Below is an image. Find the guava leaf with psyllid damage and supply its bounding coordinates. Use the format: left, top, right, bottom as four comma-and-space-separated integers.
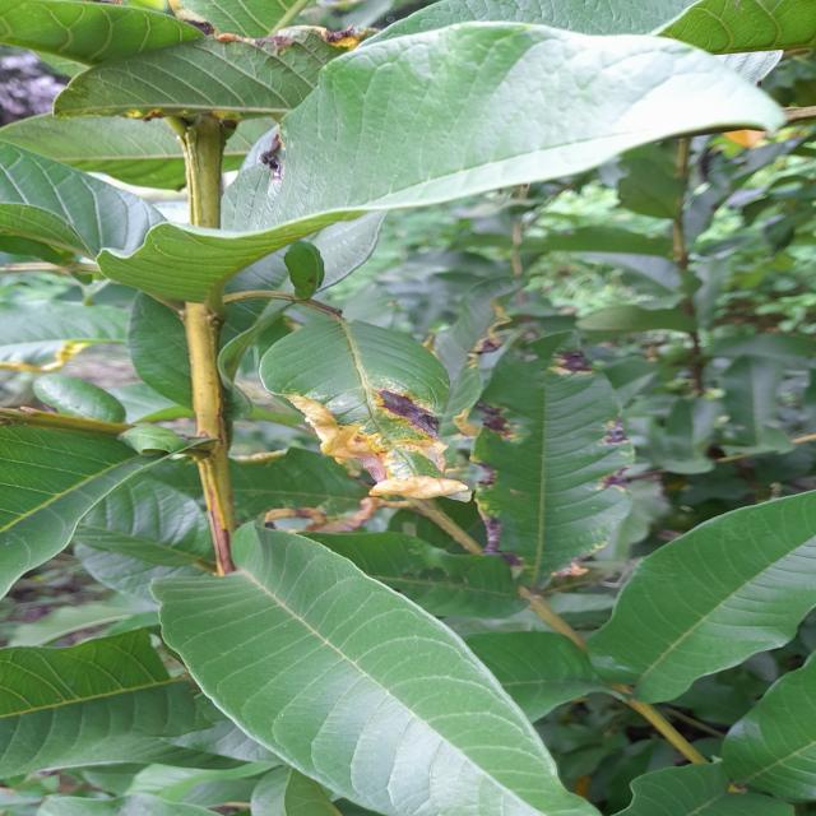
245, 296, 502, 500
